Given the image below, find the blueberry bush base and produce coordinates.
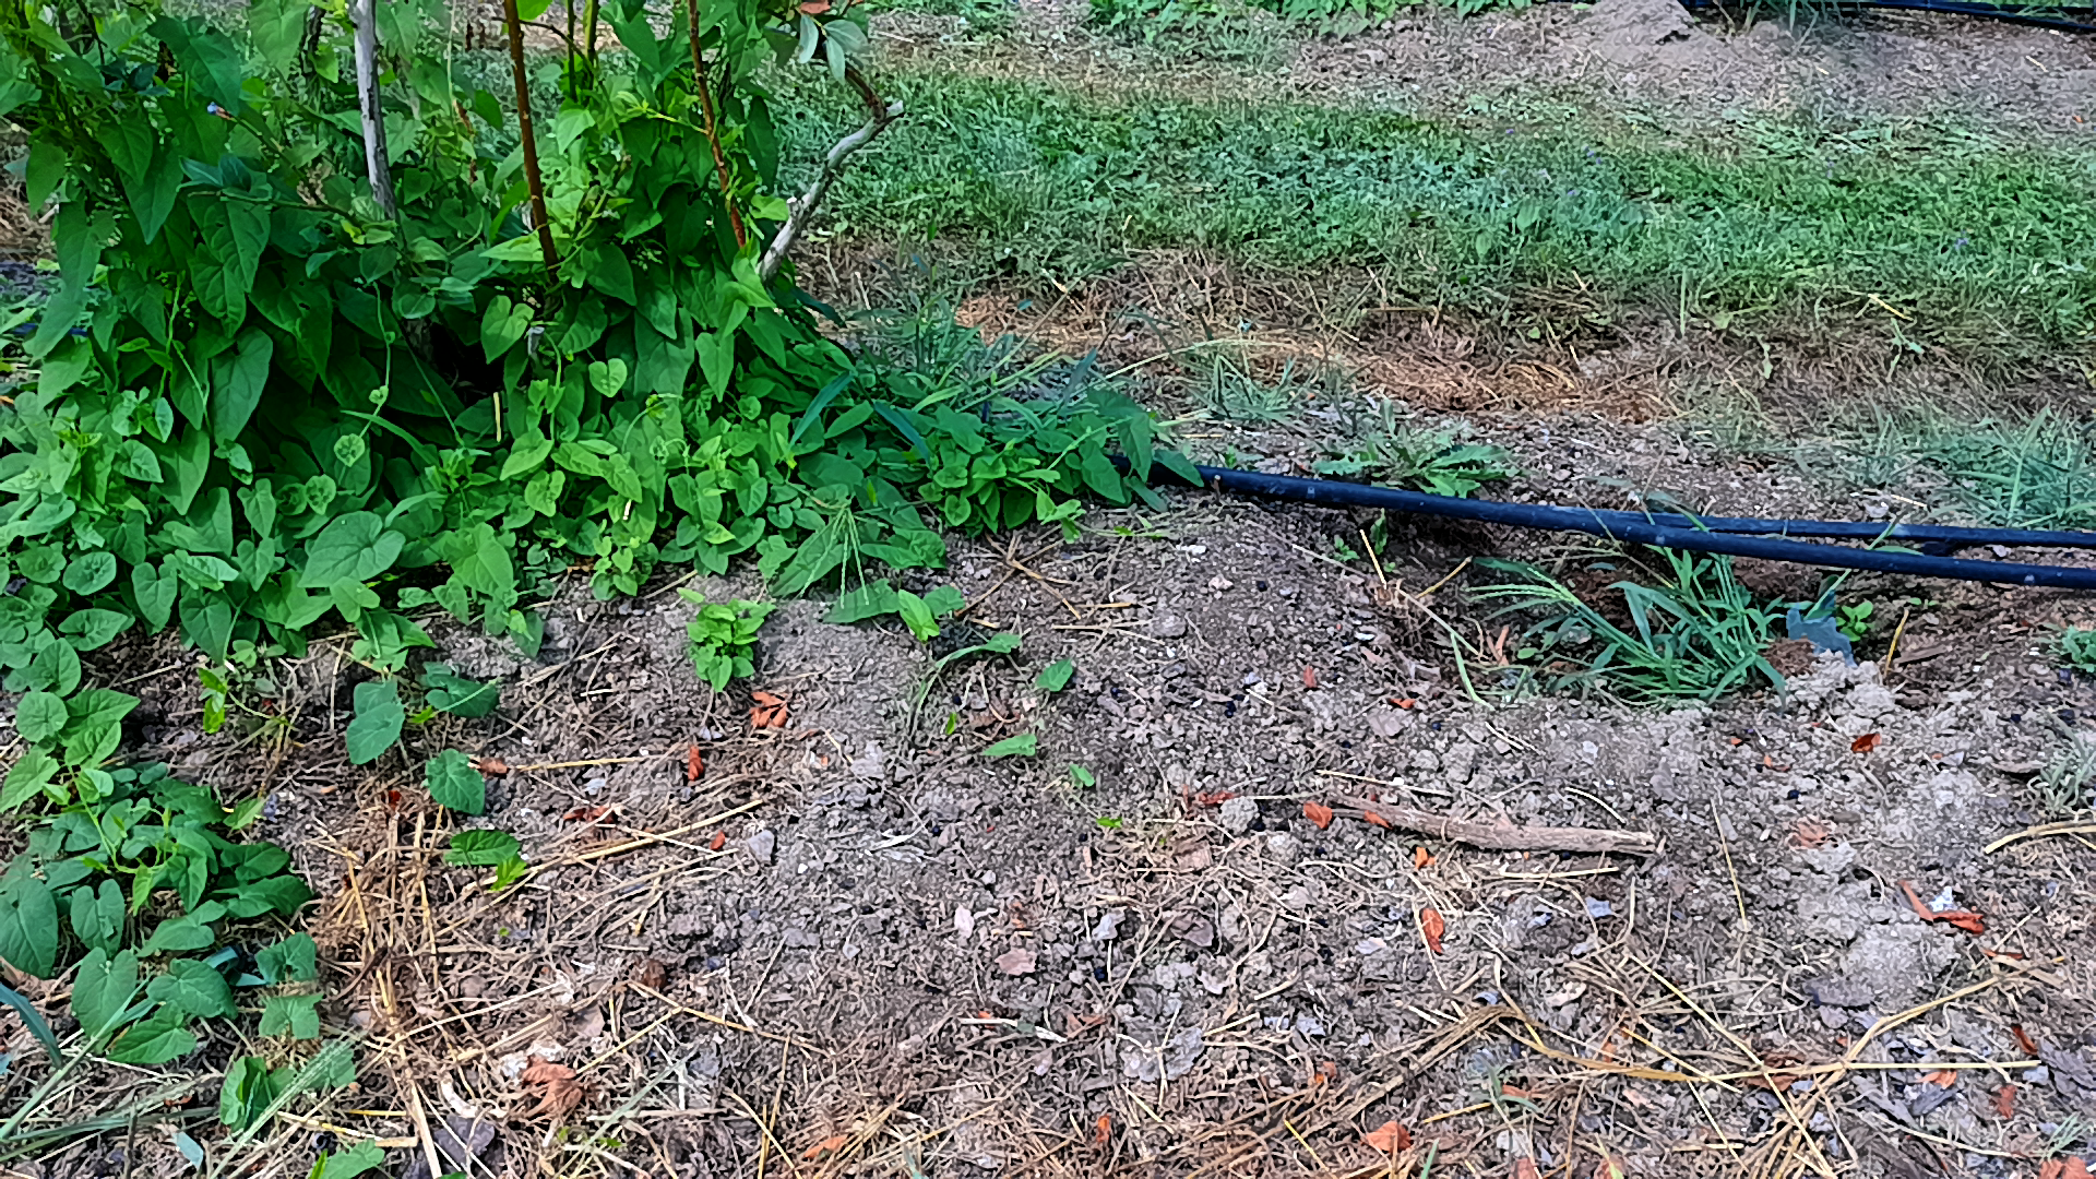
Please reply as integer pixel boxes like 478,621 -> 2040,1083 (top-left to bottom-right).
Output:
27,111 -> 846,491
